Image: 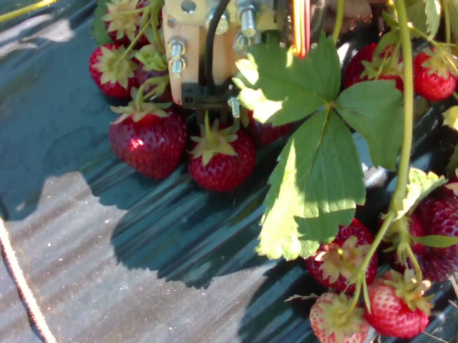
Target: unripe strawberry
[314,297,367,343]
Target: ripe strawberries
[104,3,140,40]
[112,110,190,177]
[186,129,251,182]
[414,50,457,96]
[252,91,295,139]
[363,278,430,331]
[327,223,373,278]
[90,43,136,93]
[343,41,405,98]
[403,205,458,278]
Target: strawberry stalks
[401,244,426,300]
[333,281,368,327]
[134,73,166,129]
[109,27,148,71]
[202,108,216,159]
